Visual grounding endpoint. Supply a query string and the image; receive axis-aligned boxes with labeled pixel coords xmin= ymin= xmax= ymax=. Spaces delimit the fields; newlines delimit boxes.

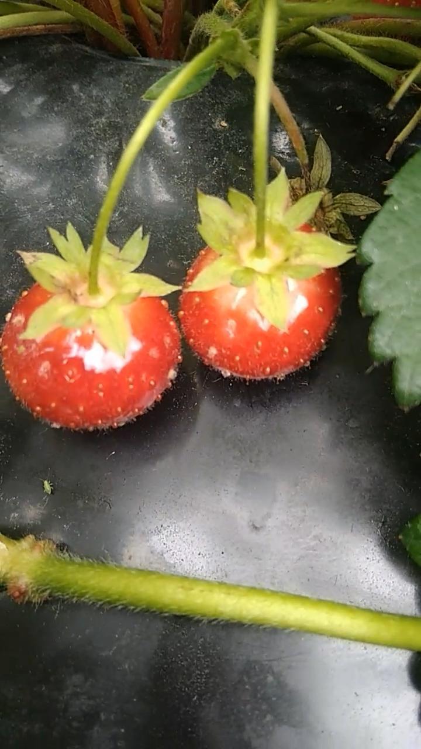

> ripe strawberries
xmin=180 ymin=238 xmax=348 ymax=387
xmin=0 ymin=265 xmax=180 ymax=436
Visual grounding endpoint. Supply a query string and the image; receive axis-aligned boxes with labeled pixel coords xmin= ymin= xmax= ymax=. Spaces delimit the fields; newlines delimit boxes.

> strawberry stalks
xmin=49 ymin=125 xmax=155 ymax=343
xmin=245 ymin=7 xmax=282 ymax=300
